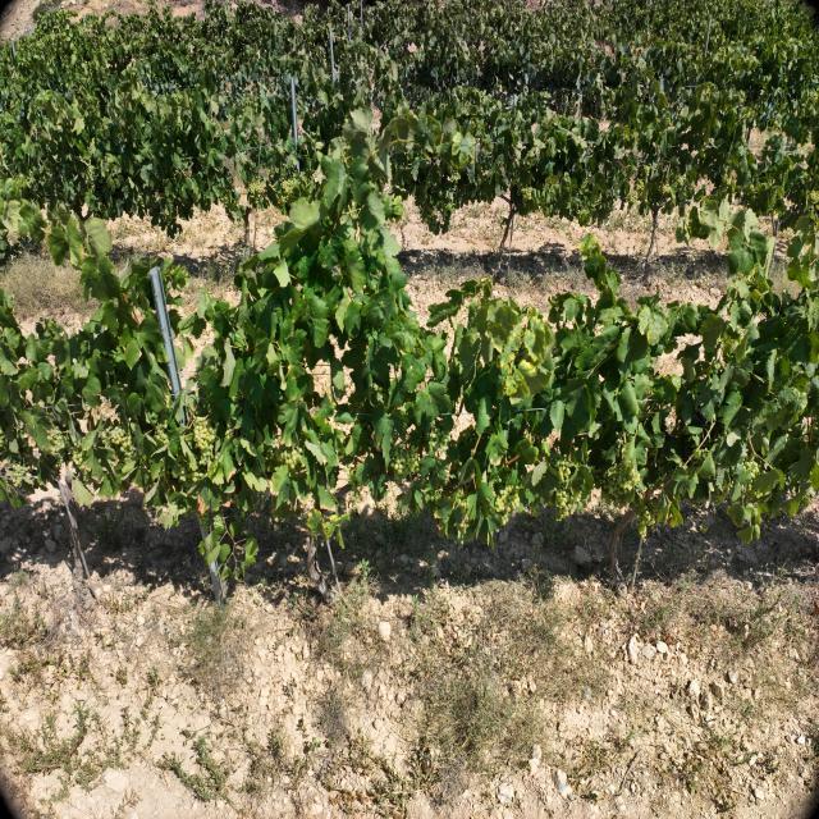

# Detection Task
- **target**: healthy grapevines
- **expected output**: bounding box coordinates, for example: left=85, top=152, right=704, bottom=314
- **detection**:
left=0, top=239, right=215, bottom=626
left=465, top=207, right=819, bottom=623
left=203, top=200, right=465, bottom=630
